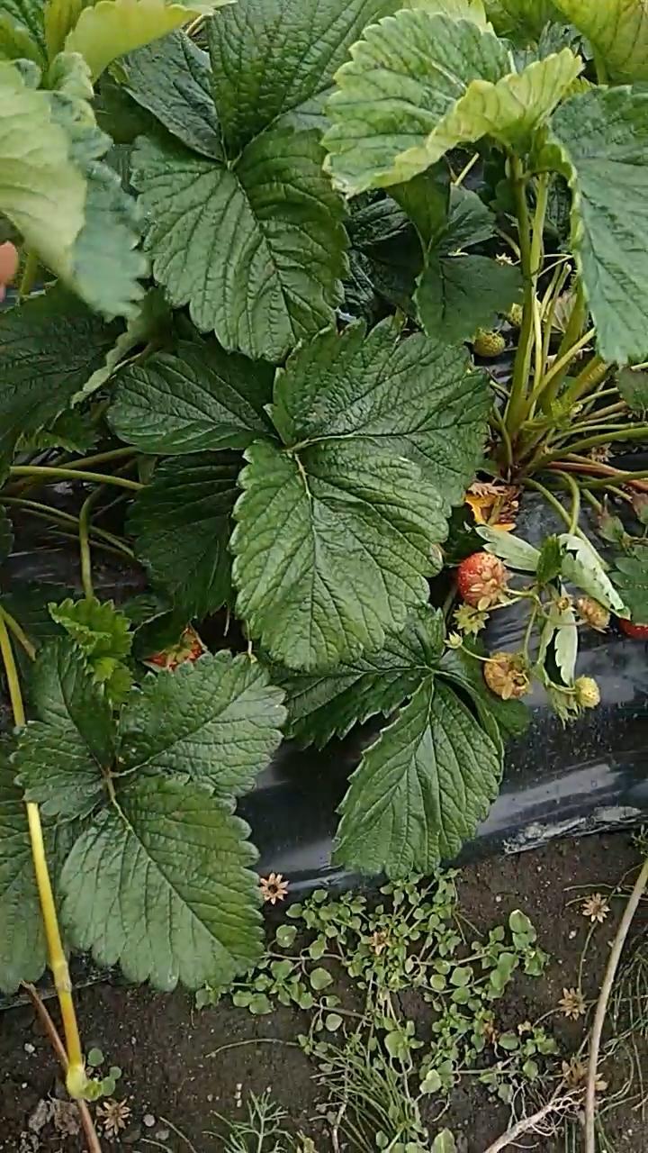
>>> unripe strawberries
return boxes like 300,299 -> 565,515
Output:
464,317 -> 517,370
485,650 -> 529,700
577,676 -> 604,713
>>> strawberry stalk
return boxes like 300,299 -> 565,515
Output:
489,582 -> 538,598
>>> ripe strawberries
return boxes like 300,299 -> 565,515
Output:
453,550 -> 509,606
146,618 -> 212,678
616,589 -> 648,647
